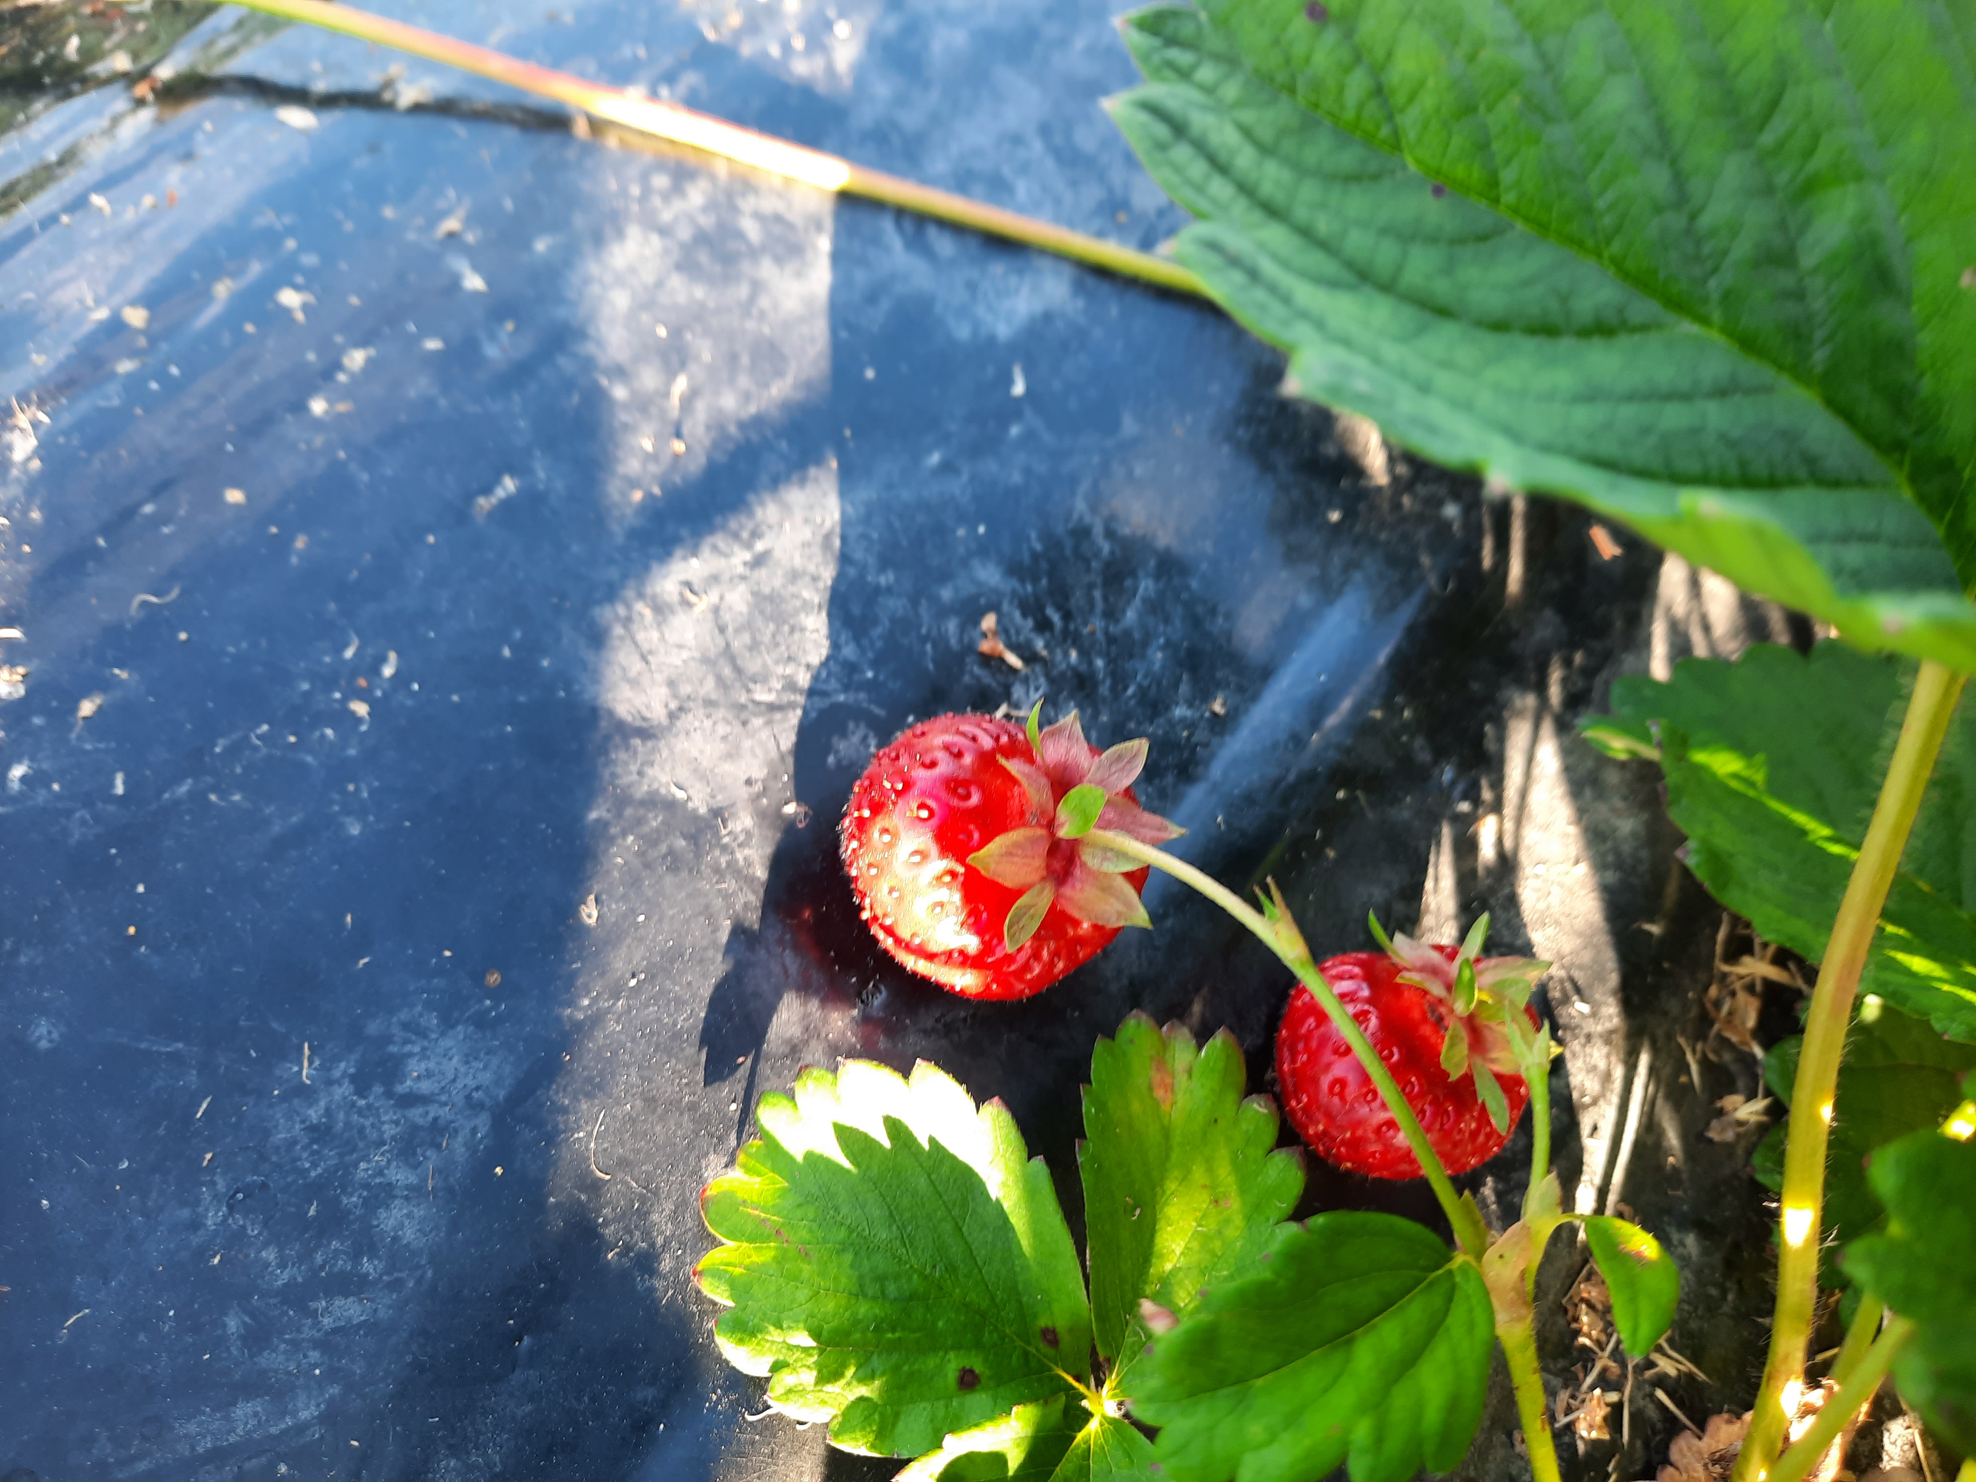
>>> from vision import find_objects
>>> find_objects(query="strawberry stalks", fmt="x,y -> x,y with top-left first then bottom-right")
1041,807 -> 1307,972
1427,977 -> 1571,1213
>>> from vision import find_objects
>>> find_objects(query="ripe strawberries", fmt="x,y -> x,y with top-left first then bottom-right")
813,701 -> 1154,1001
1303,965 -> 1516,1169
